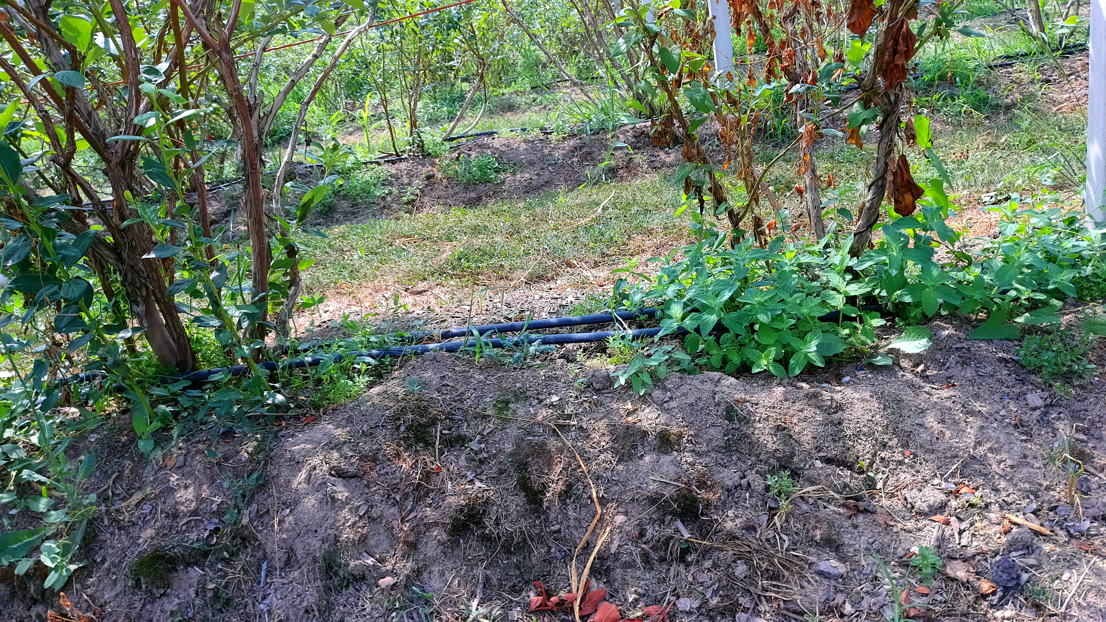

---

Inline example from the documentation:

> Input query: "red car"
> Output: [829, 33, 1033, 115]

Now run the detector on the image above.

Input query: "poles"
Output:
[705, 2, 742, 89]
[1087, 3, 1105, 249]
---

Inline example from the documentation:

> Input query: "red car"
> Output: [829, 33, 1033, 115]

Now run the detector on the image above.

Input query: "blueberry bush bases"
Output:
[89, 246, 331, 437]
[590, 87, 693, 147]
[1017, 18, 1081, 69]
[658, 184, 912, 389]
[369, 104, 483, 181]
